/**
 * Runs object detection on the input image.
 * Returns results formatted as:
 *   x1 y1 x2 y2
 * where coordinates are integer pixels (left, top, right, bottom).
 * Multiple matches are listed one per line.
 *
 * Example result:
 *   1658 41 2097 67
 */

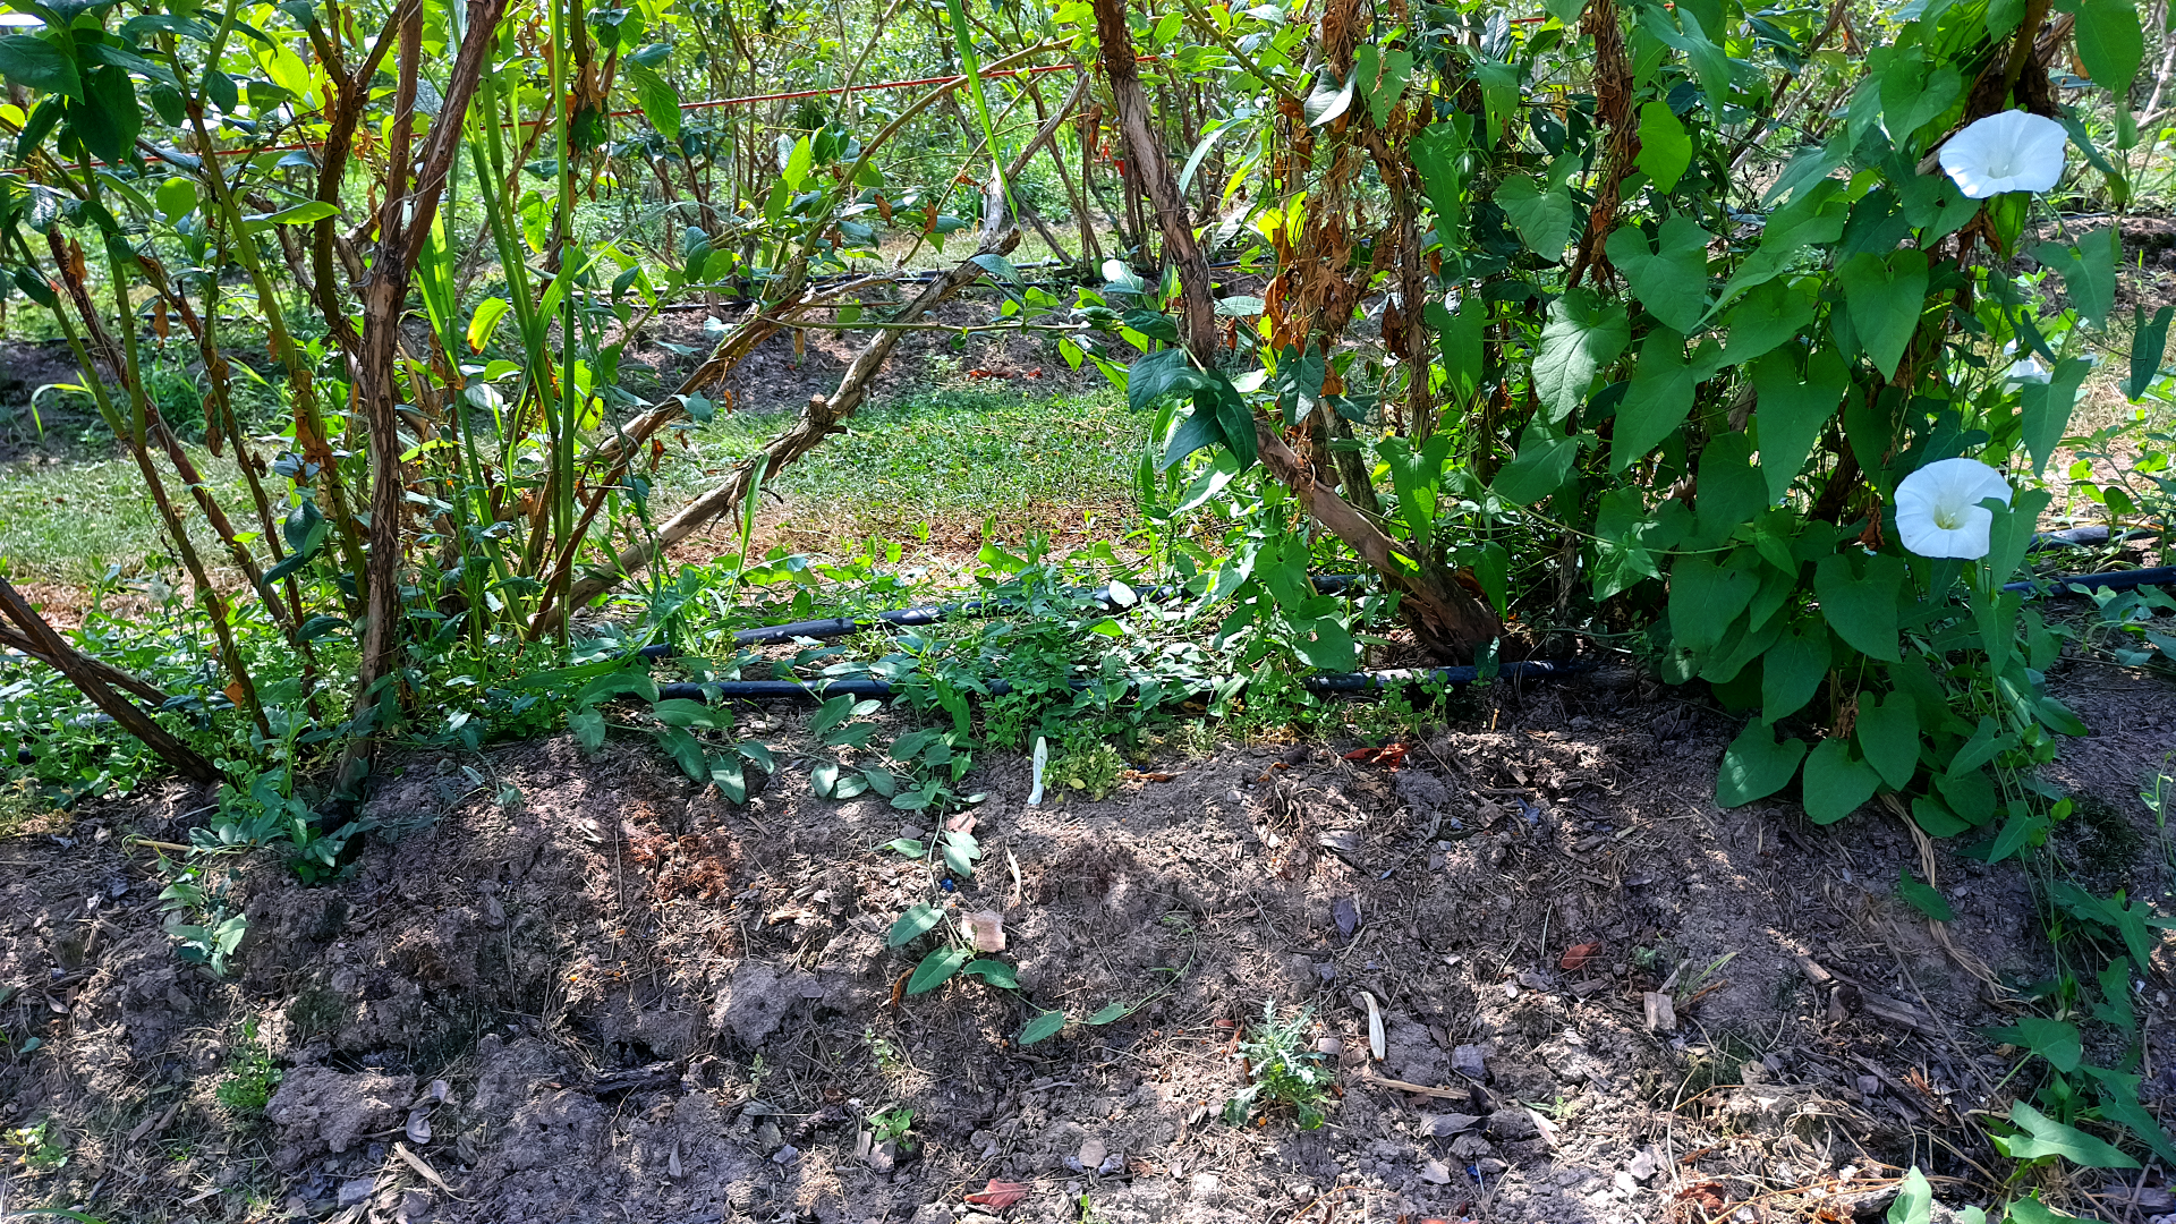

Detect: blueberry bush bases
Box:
1234 349 1867 824
60 479 685 878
